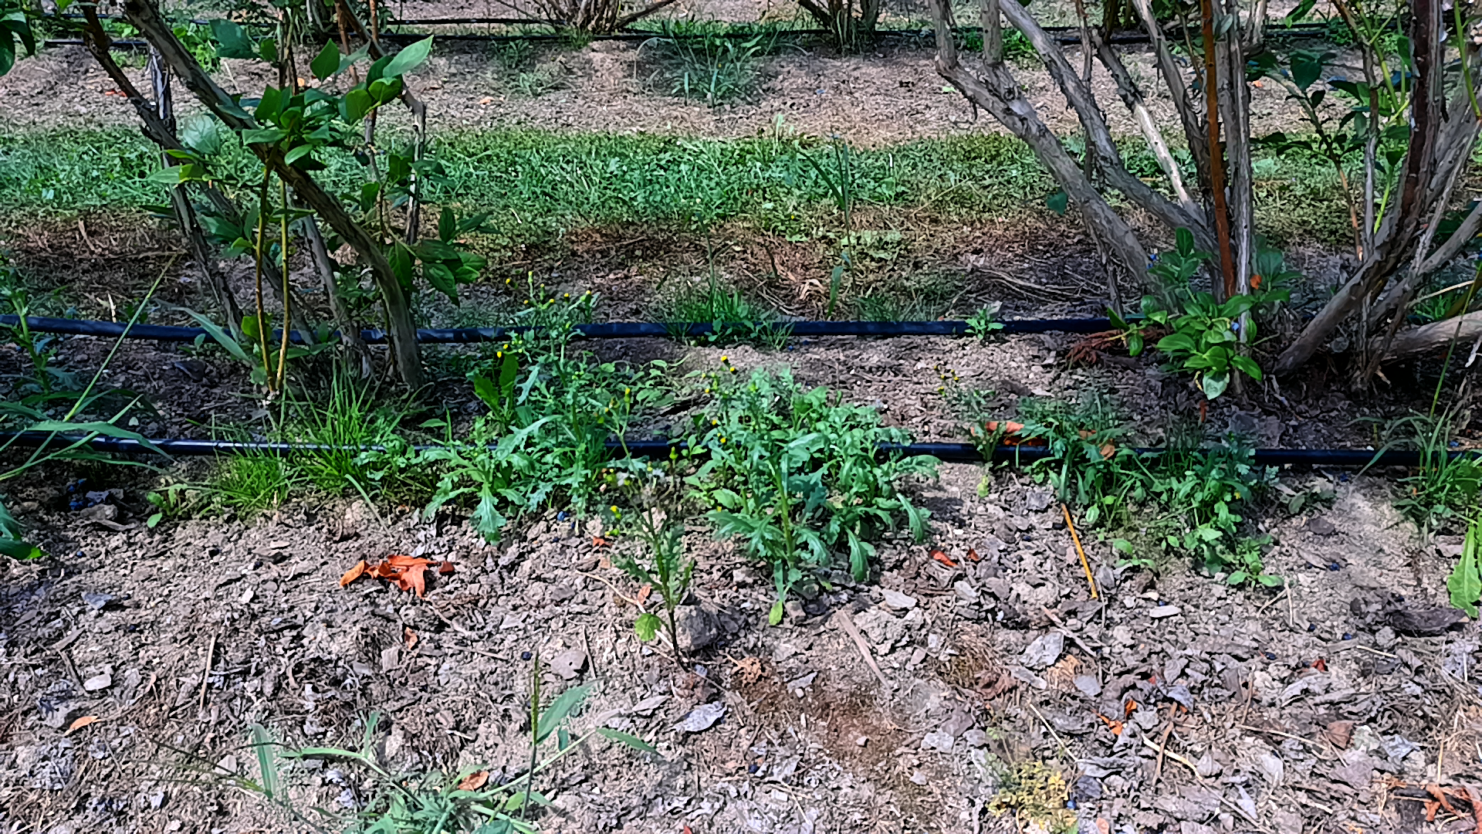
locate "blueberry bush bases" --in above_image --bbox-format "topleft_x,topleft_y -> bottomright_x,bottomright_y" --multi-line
208,268 -> 458,500
803,5 -> 885,59
1056,160 -> 1482,459
527,0 -> 640,55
